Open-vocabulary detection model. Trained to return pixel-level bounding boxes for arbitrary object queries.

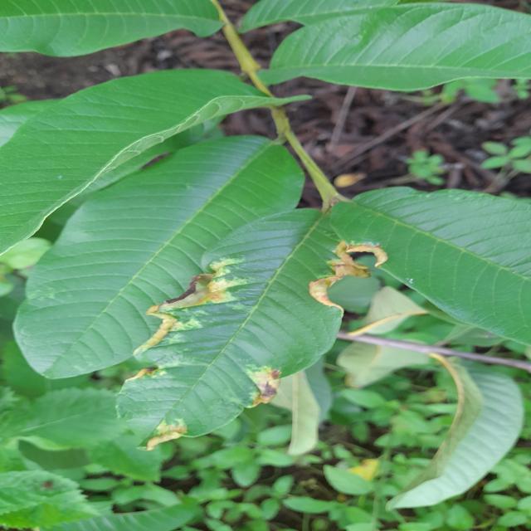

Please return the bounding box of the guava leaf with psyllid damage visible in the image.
[92,203,357,480]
